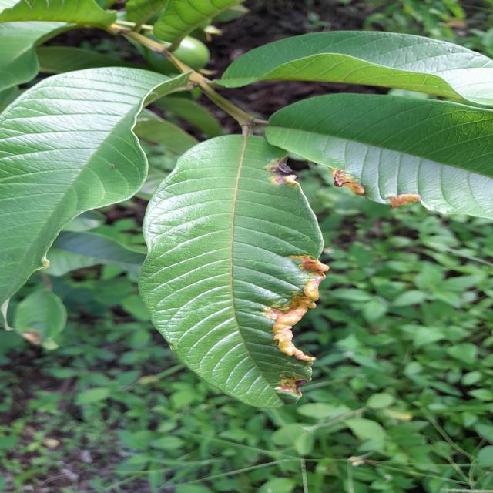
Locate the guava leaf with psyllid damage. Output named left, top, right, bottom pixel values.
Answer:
left=132, top=132, right=349, bottom=435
